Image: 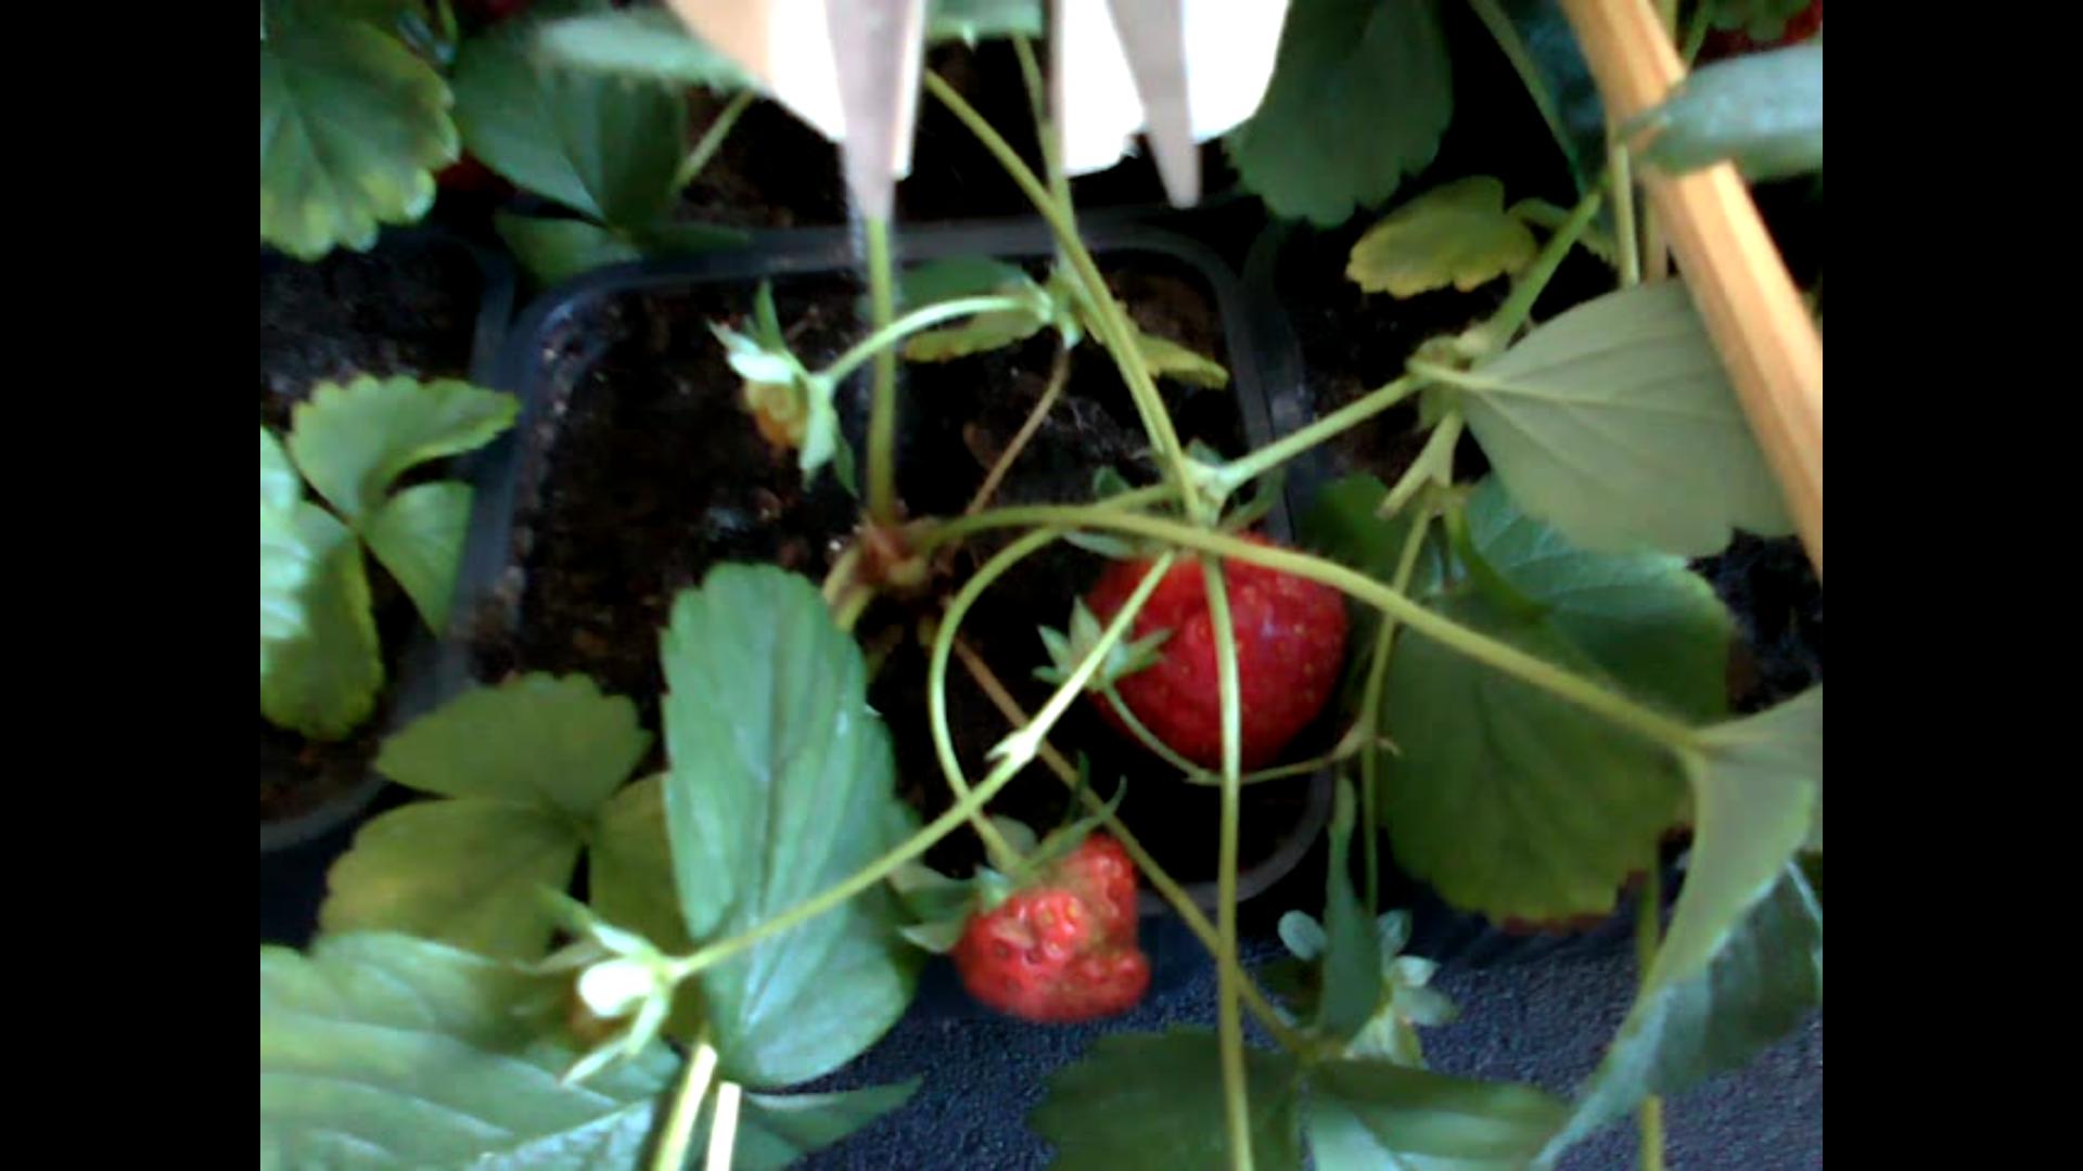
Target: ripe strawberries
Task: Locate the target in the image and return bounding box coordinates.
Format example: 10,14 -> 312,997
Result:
951,825 -> 1196,1032
1080,489 -> 1400,768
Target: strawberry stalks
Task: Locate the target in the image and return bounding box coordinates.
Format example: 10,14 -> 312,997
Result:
892,662 -> 1077,927
623,900 -> 842,992
1103,335 -> 1244,580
